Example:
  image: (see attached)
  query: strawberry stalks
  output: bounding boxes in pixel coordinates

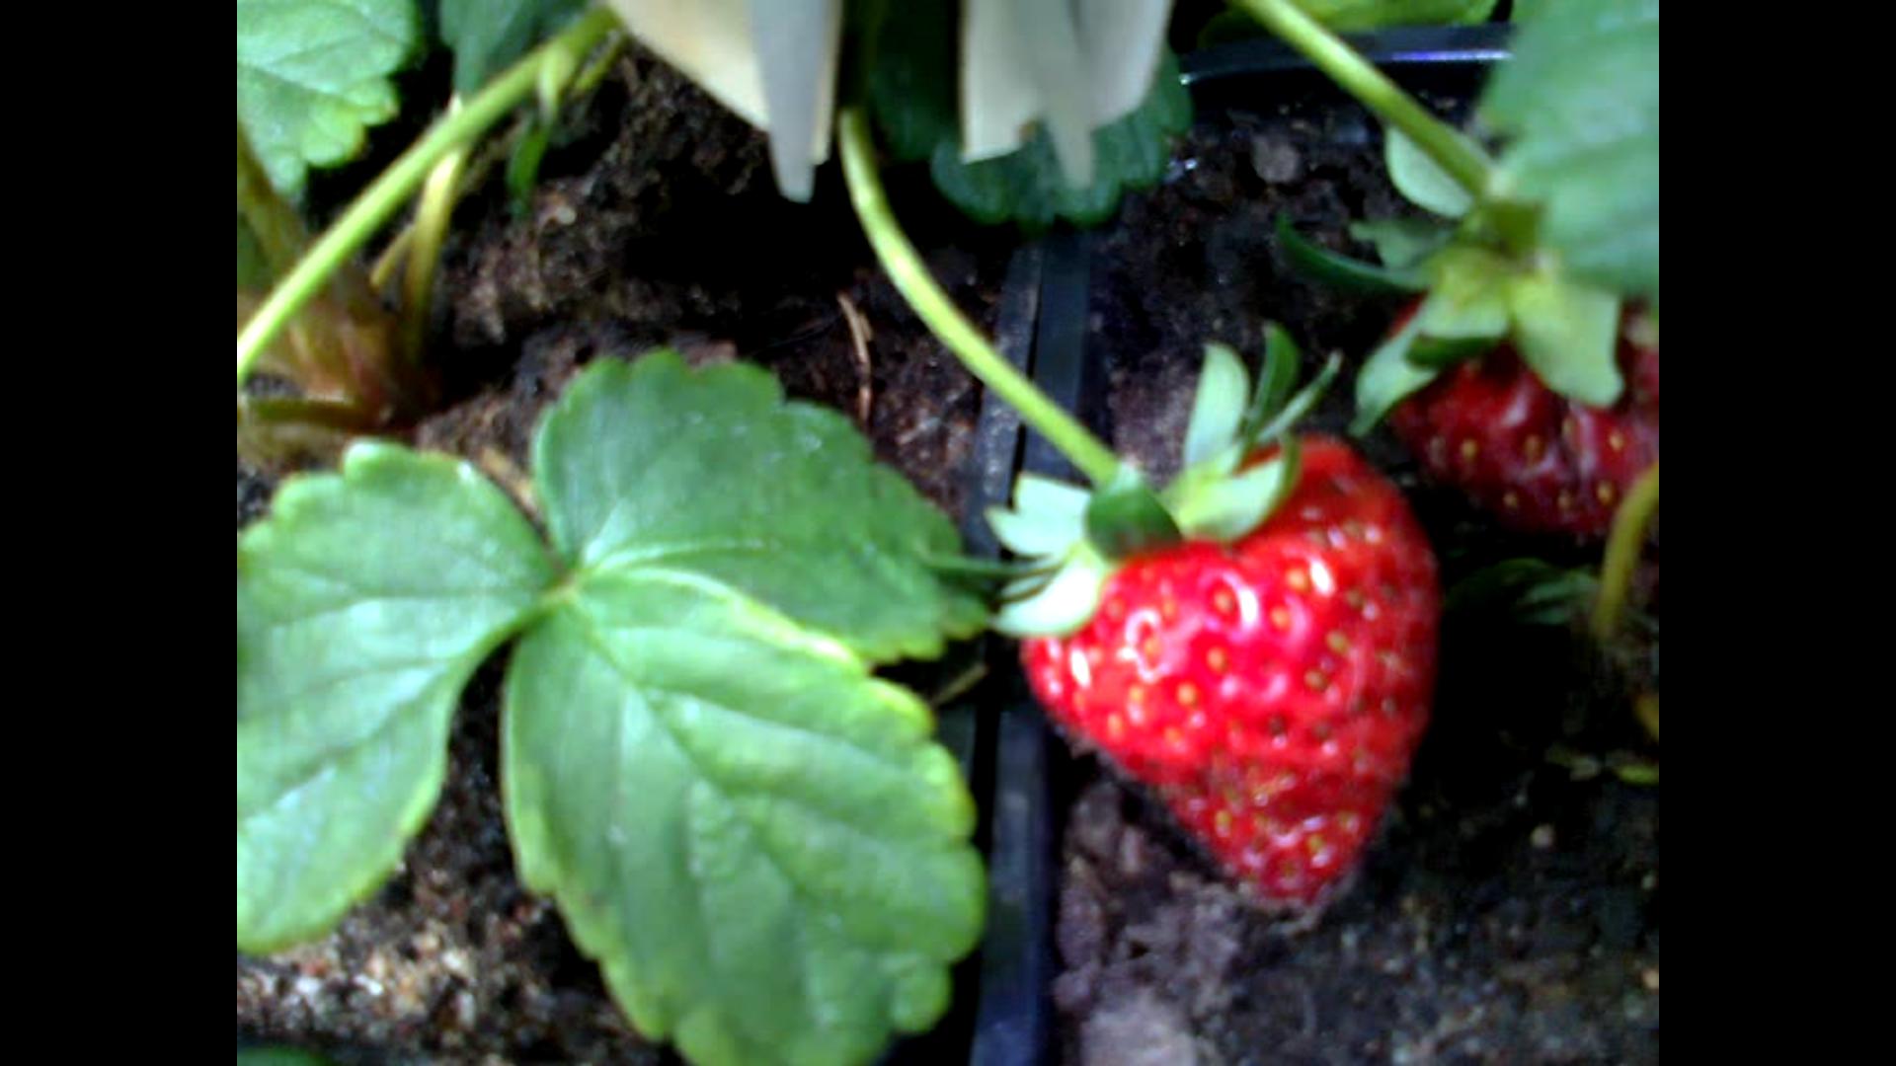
[812,148,1263,567]
[1228,1,1582,346]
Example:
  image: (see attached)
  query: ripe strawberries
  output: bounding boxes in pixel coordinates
[1369,269,1655,538]
[994,398,1444,935]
